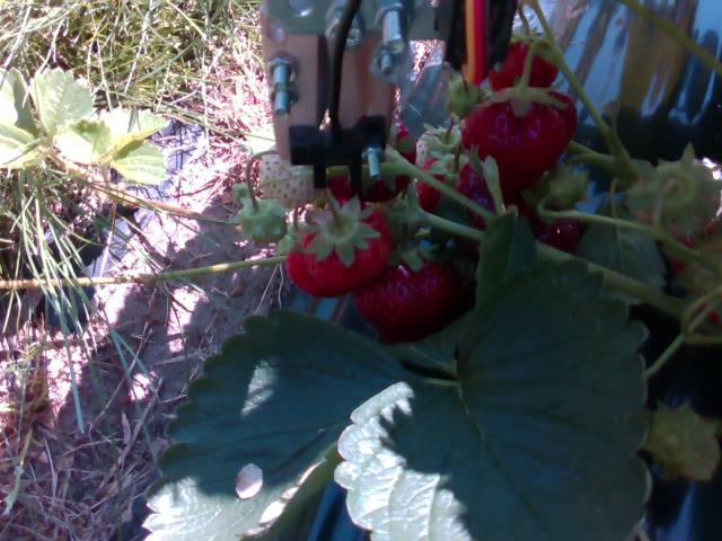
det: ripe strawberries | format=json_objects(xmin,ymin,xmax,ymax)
[
  {"xmin": 471, "ymin": 87, "xmax": 583, "ymax": 179},
  {"xmin": 355, "ymin": 256, "xmax": 450, "ymax": 329},
  {"xmin": 489, "ymin": 37, "xmax": 560, "ymax": 94},
  {"xmin": 289, "ymin": 200, "xmax": 391, "ymax": 296},
  {"xmin": 415, "ymin": 155, "xmax": 472, "ymax": 206}
]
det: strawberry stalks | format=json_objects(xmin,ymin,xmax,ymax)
[
  {"xmin": 315, "ymin": 180, "xmax": 344, "ymax": 246},
  {"xmin": 506, "ymin": 42, "xmax": 549, "ymax": 128}
]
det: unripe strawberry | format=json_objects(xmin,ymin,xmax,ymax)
[{"xmin": 253, "ymin": 151, "xmax": 311, "ymax": 210}]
